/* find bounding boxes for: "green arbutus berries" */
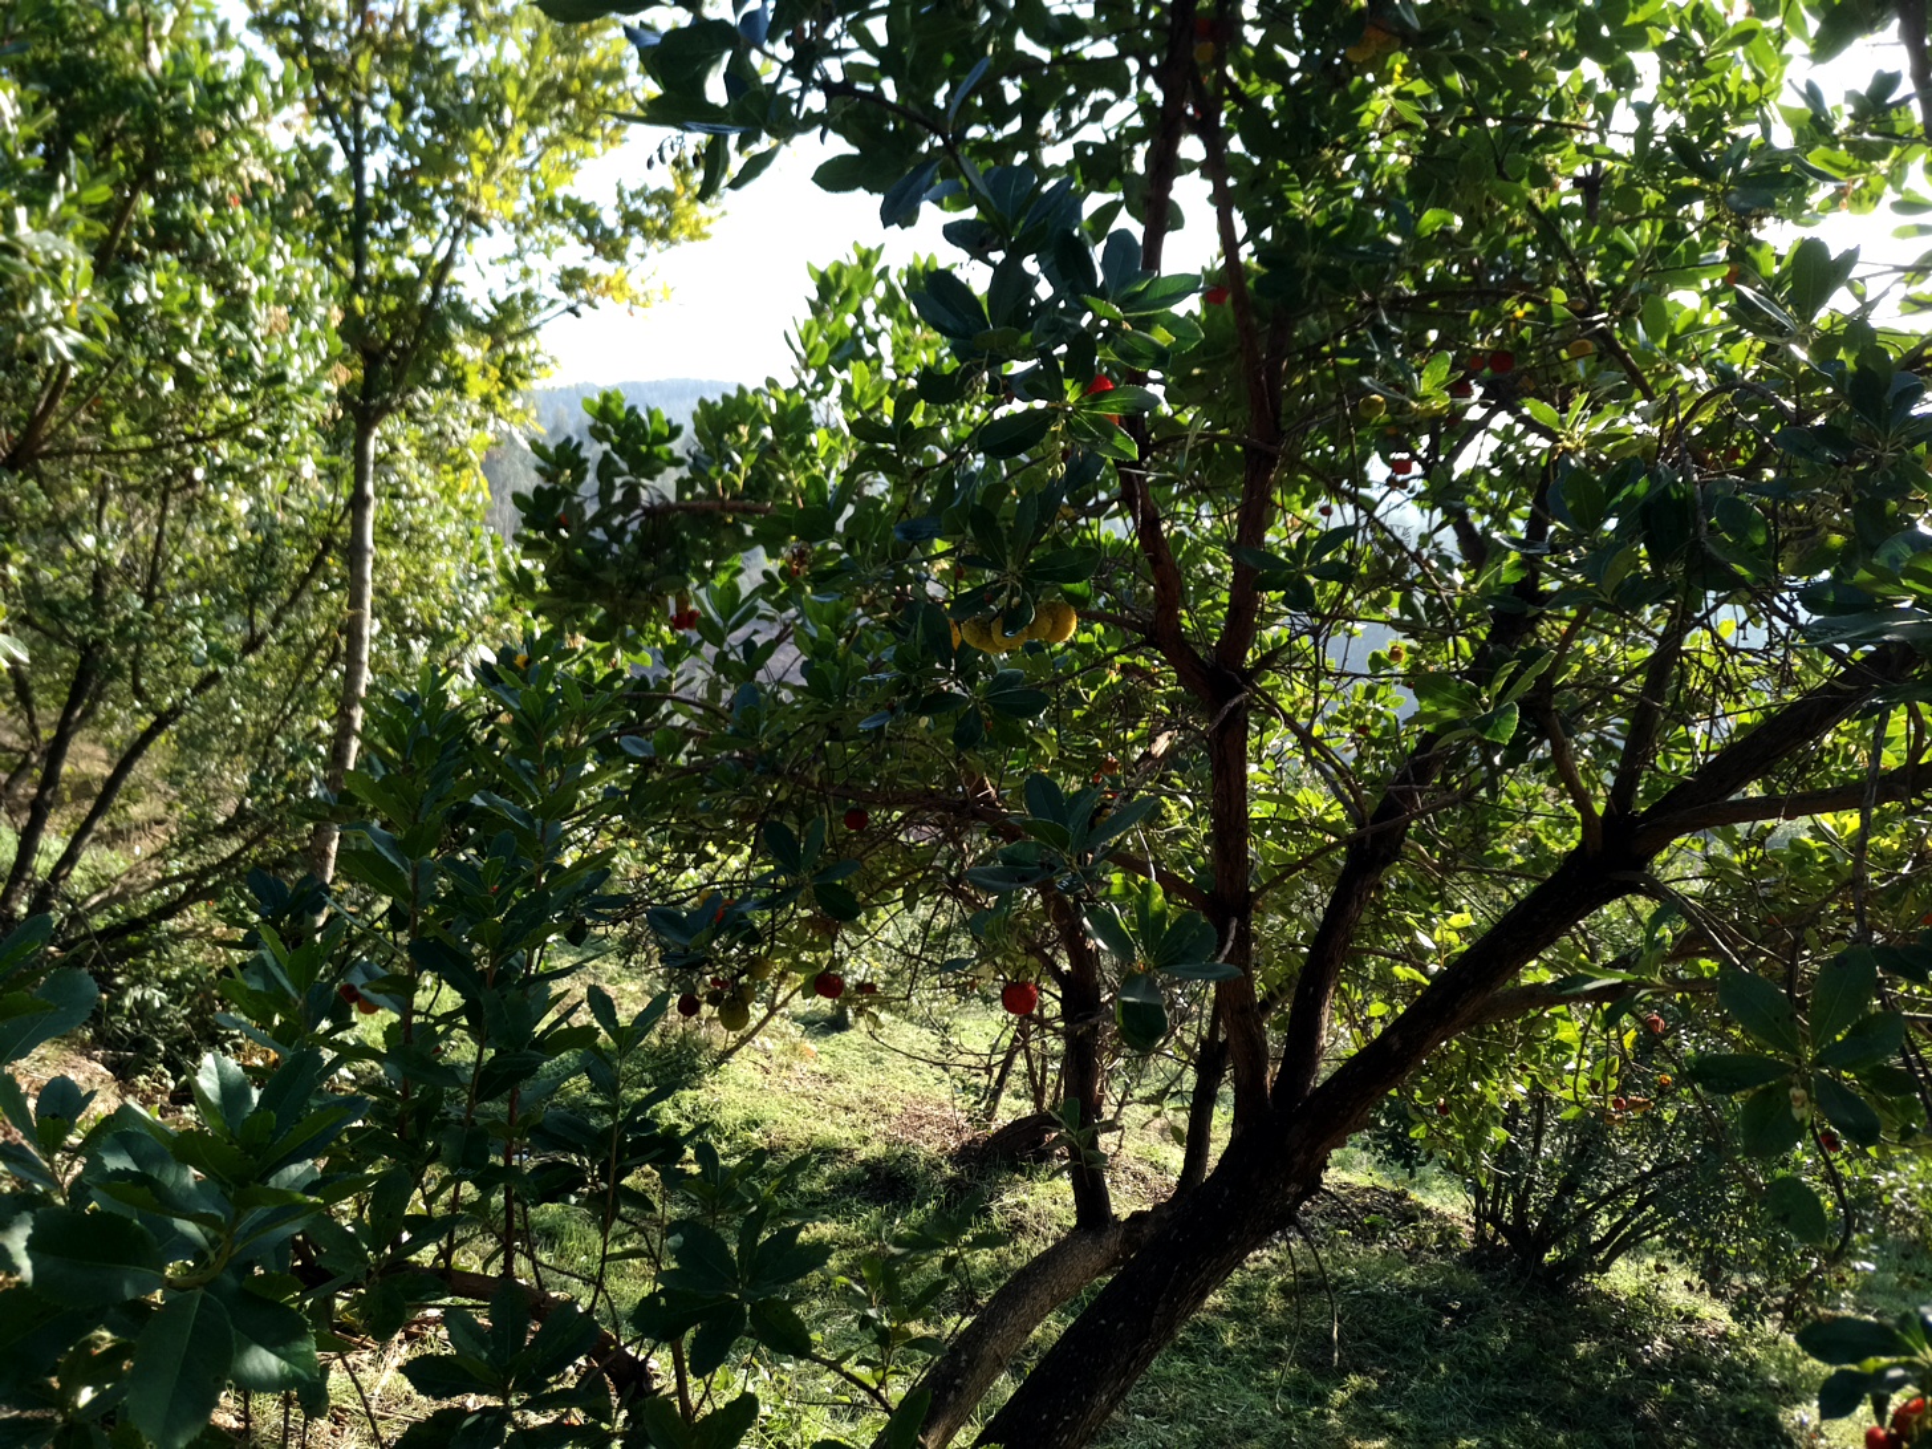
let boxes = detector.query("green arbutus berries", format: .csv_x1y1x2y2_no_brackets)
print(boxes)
1614,1114,1626,1126
748,954,772,981
735,983,757,1002
1358,394,1387,419
1567,339,1592,357
1603,1114,1615,1127
718,997,748,1034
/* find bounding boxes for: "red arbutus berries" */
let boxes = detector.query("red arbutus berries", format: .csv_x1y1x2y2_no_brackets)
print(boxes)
1613,1097,1626,1109
673,612,689,629
711,976,721,986
1489,350,1515,373
1451,380,1472,396
1863,1426,1898,1449
358,992,379,1015
1001,979,1039,1016
1083,373,1117,395
1647,1017,1666,1035
1320,505,1333,516
1393,459,1412,474
844,806,868,830
1205,286,1227,305
1436,1102,1450,1116
814,972,846,999
340,982,361,1002
685,610,702,629
1892,1394,1931,1439
1357,724,1369,736
679,993,700,1017
1467,356,1485,371
1818,1129,1839,1145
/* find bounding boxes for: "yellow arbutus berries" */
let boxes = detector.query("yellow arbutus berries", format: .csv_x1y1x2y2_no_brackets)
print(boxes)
1389,647,1404,661
515,654,528,666
1658,1074,1672,1087
1641,1098,1654,1112
992,616,1029,648
1044,600,1078,643
1347,38,1377,63
1100,756,1121,775
1629,1096,1644,1113
960,615,1006,653
1026,601,1053,638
